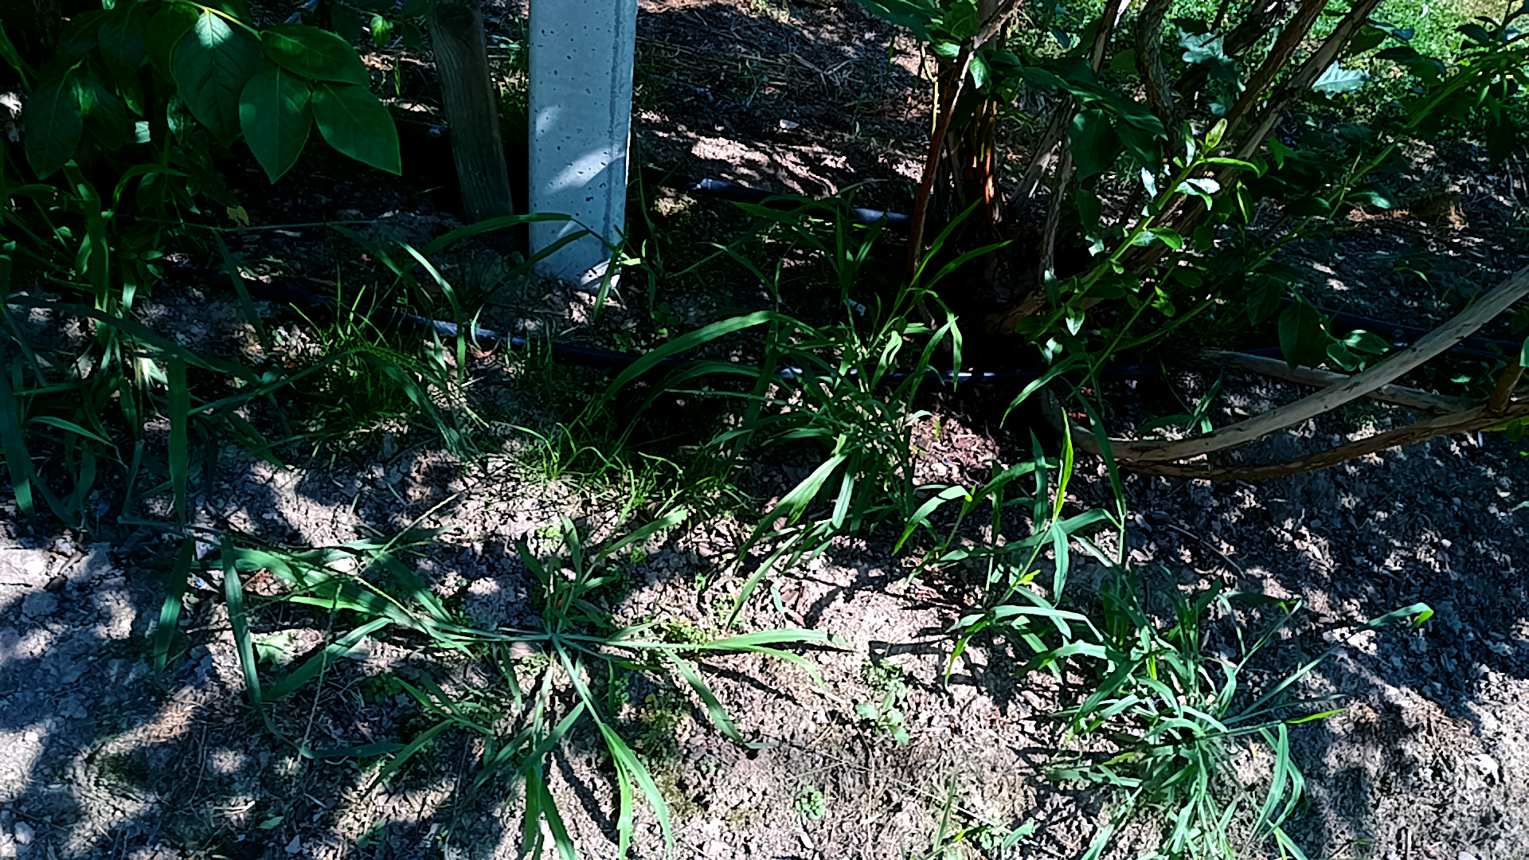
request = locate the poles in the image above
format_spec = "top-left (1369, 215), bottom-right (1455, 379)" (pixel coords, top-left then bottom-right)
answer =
top-left (520, 2), bottom-right (641, 307)
top-left (421, 1), bottom-right (517, 245)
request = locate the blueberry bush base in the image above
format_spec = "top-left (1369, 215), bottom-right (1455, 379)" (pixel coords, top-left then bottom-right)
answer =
top-left (863, 48), bottom-right (1390, 537)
